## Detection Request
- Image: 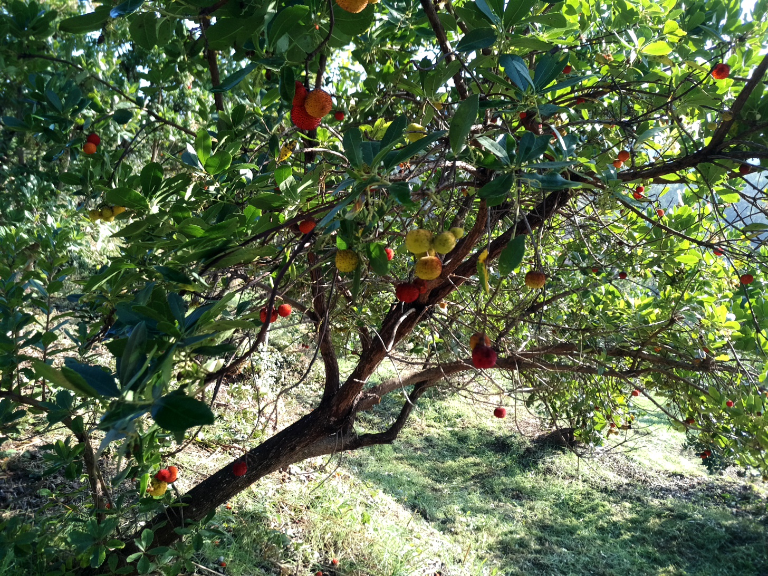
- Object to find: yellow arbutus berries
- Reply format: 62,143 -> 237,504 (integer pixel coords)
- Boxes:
523,269 -> 547,289
465,330 -> 491,349
113,205 -> 126,216
149,477 -> 168,495
335,250 -> 358,272
614,160 -> 624,168
305,86 -> 332,117
415,255 -> 442,280
81,143 -> 97,155
333,0 -> 367,17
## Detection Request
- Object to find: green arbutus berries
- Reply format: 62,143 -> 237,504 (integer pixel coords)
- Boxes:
706,121 -> 718,130
101,208 -> 112,217
102,217 -> 114,223
407,122 -> 427,142
431,229 -> 458,253
405,226 -> 431,254
448,222 -> 464,239
722,111 -> 733,122
88,208 -> 100,219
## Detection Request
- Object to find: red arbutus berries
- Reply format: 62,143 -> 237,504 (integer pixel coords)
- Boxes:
383,246 -> 395,261
741,274 -> 753,285
711,61 -> 729,79
334,111 -> 344,121
592,267 -> 598,272
634,192 -> 642,199
159,470 -> 171,480
577,96 -> 585,104
713,247 -> 724,256
726,400 -> 733,407
281,77 -> 308,105
636,185 -> 644,193
232,460 -> 248,476
656,209 -> 664,217
412,278 -> 428,295
519,112 -> 526,118
700,452 -> 706,459
301,344 -> 305,347
306,345 -> 309,348
617,149 -> 629,161
632,389 -> 638,396
687,417 -> 695,423
494,407 -> 506,418
86,133 -> 102,145
278,303 -> 291,317
703,449 -> 711,456
167,466 -> 177,482
618,272 -> 627,279
739,163 -> 751,174
290,102 -> 323,130
563,66 -> 571,73
395,283 -> 419,302
299,221 -> 315,233
471,344 -> 496,369
257,306 -> 278,322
